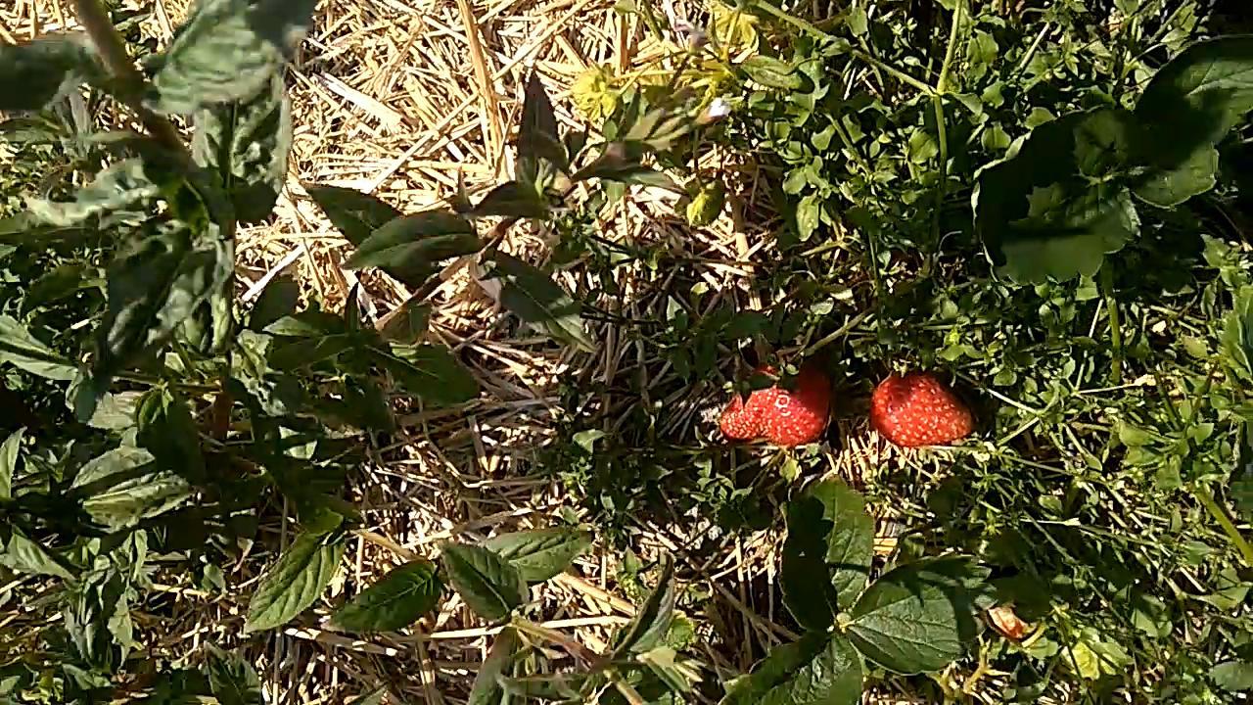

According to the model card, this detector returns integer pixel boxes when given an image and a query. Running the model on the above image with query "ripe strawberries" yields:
[870,366,975,451]
[718,337,838,452]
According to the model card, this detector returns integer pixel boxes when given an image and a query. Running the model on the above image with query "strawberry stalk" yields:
[783,317,857,383]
